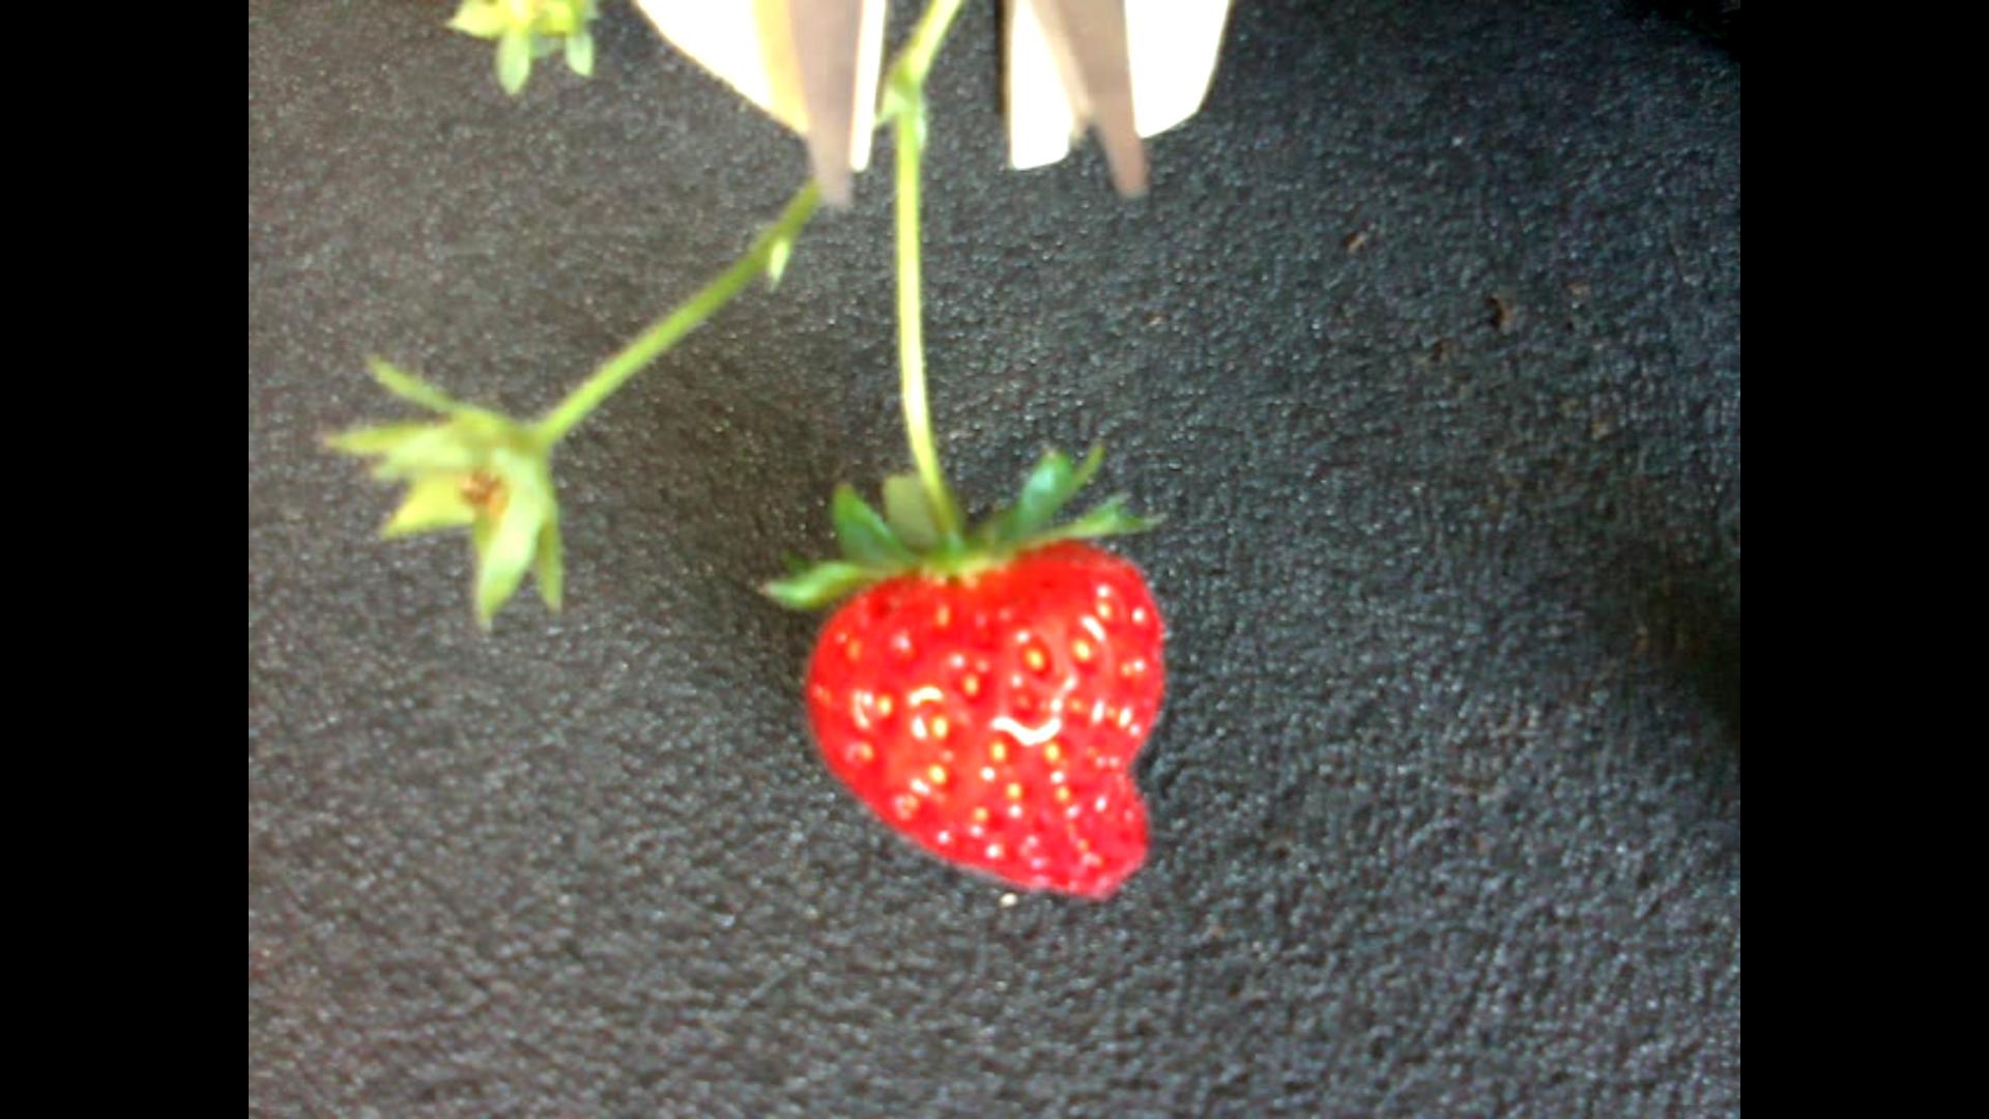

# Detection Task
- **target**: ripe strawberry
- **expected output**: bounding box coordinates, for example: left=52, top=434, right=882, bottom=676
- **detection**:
left=775, top=486, right=1187, bottom=908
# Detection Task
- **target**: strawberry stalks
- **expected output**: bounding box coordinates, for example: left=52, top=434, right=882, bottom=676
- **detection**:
left=491, top=352, right=696, bottom=461
left=862, top=153, right=977, bottom=620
